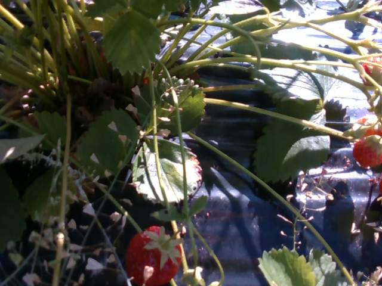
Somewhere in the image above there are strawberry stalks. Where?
[374,118,382,149]
[156,212,191,257]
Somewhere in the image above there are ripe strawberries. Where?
[350,128,382,171]
[360,47,382,84]
[121,221,186,286]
